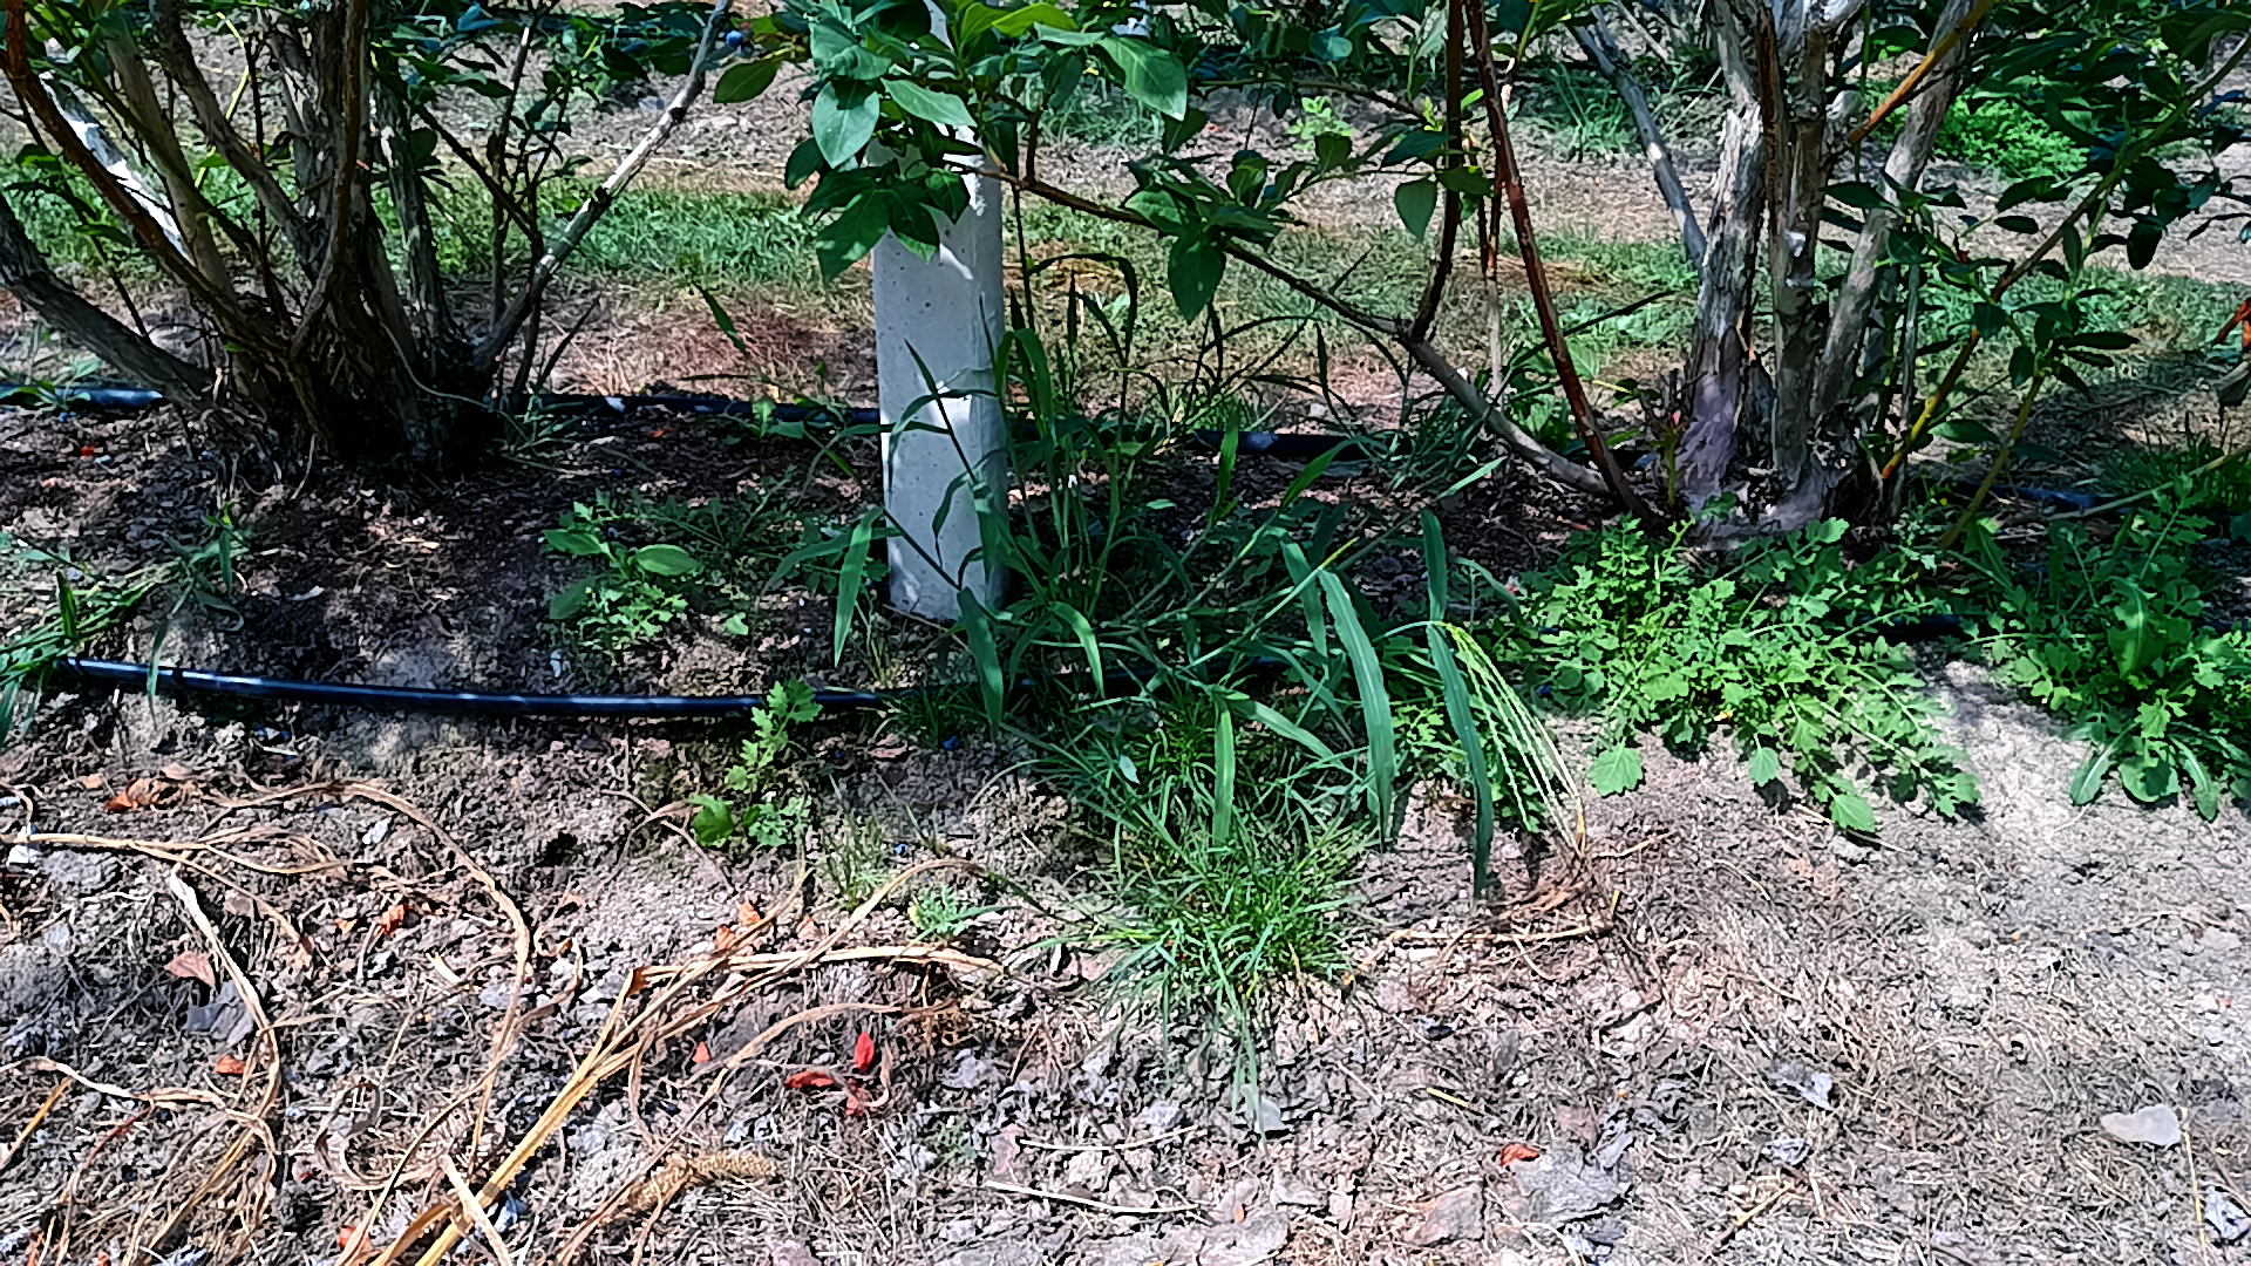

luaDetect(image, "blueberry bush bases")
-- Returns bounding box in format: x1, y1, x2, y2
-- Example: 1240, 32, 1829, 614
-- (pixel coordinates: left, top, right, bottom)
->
1430, 251, 2059, 667
54, 177, 605, 571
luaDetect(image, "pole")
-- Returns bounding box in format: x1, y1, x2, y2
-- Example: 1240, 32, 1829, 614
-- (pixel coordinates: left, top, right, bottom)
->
845, 190, 1035, 648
